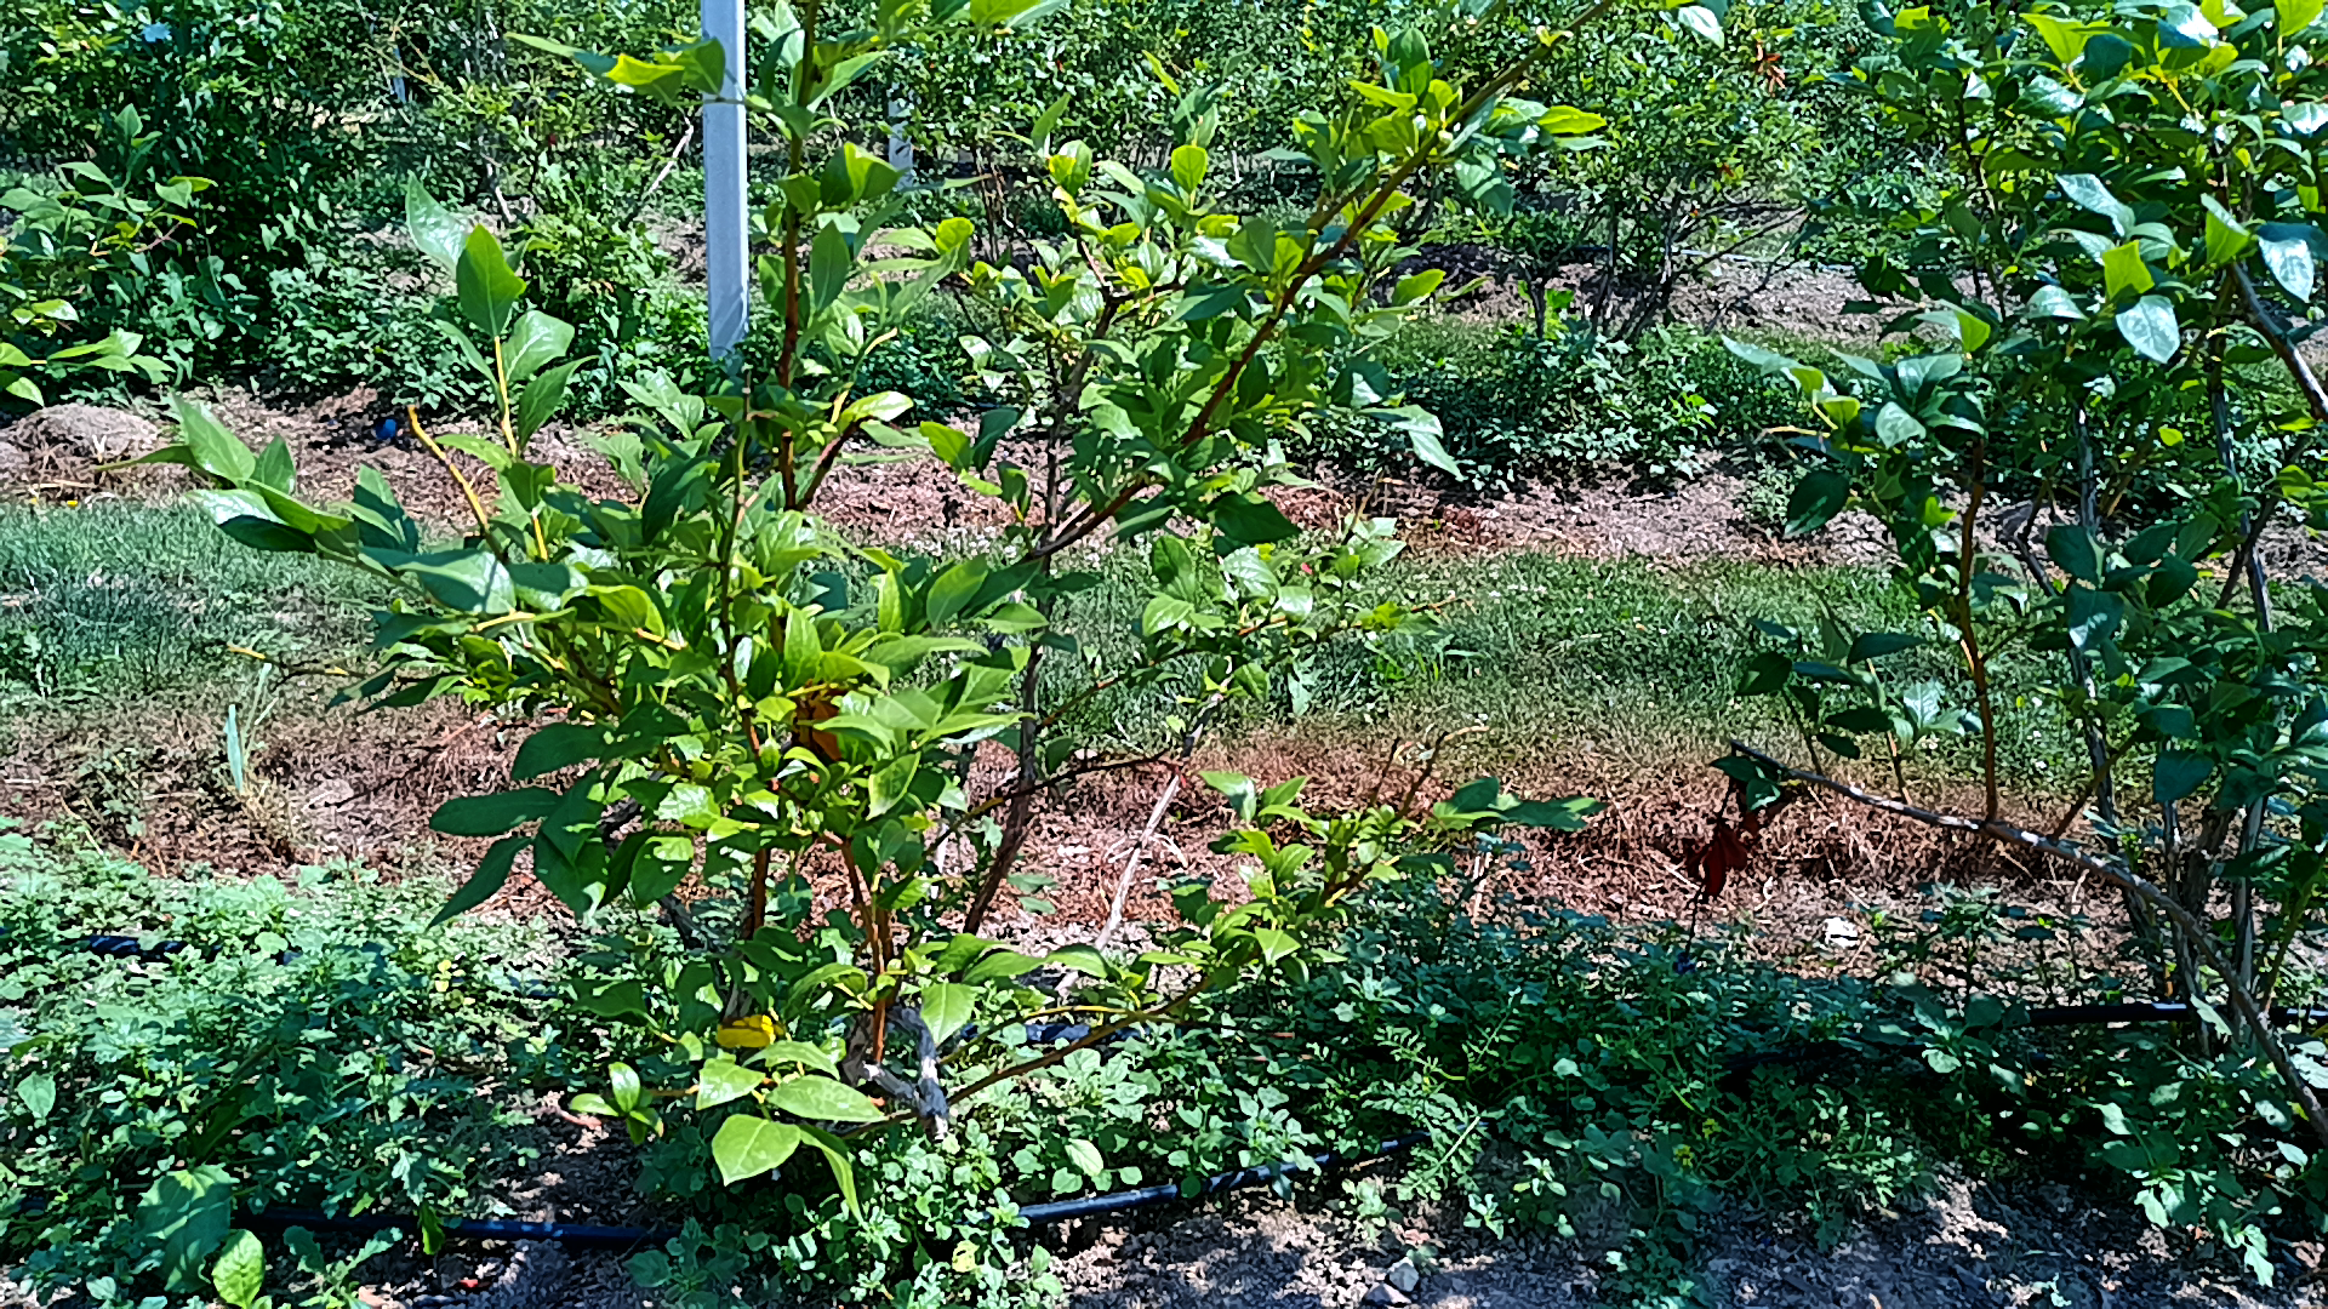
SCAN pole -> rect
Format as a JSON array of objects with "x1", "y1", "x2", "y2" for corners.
[{"x1": 691, "y1": 2, "x2": 755, "y2": 383}]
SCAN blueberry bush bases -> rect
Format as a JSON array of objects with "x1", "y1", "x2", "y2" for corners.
[
  {"x1": 1490, "y1": 282, "x2": 1676, "y2": 425},
  {"x1": 2040, "y1": 876, "x2": 2327, "y2": 1276},
  {"x1": 483, "y1": 204, "x2": 640, "y2": 335},
  {"x1": 618, "y1": 876, "x2": 1016, "y2": 1261}
]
